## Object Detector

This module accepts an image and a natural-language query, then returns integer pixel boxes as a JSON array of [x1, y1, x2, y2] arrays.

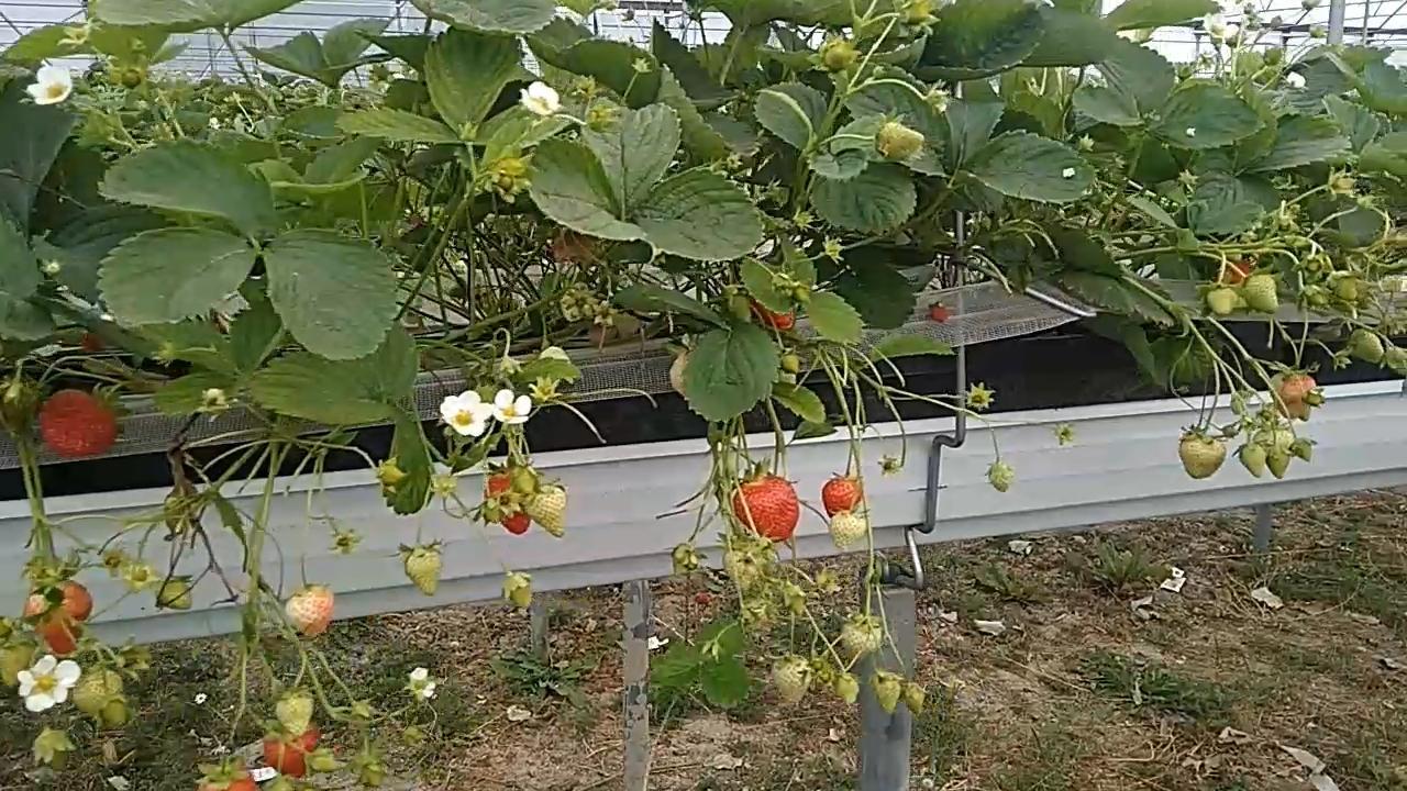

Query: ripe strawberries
[[264, 736, 319, 779], [38, 617, 83, 659], [32, 578, 97, 619], [40, 387, 124, 454], [1223, 250, 1262, 292], [30, 729, 76, 770], [1294, 437, 1323, 468], [483, 467, 536, 542], [820, 475, 860, 514], [929, 300, 952, 327], [730, 478, 804, 542], [194, 753, 258, 791], [757, 302, 798, 328]]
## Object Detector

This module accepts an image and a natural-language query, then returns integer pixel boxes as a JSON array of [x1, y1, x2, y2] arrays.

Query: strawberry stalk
[[837, 436, 863, 495]]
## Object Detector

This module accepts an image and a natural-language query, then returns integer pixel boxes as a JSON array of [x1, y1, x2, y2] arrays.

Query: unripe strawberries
[[775, 654, 809, 706], [524, 491, 576, 544], [1178, 433, 1221, 481], [843, 621, 885, 661], [1234, 445, 1269, 484], [285, 583, 337, 630], [1242, 275, 1283, 310], [0, 639, 32, 701], [835, 677, 860, 709], [156, 576, 200, 614], [379, 465, 413, 484], [275, 692, 317, 733], [1255, 428, 1294, 475], [877, 121, 922, 154], [1206, 286, 1237, 316], [987, 463, 1016, 492], [873, 678, 901, 713], [400, 550, 446, 599], [904, 685, 933, 716], [1347, 332, 1381, 364], [72, 672, 128, 722], [721, 553, 761, 589], [829, 511, 866, 542], [1327, 271, 1358, 300], [499, 575, 535, 609], [1272, 375, 1321, 421]]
